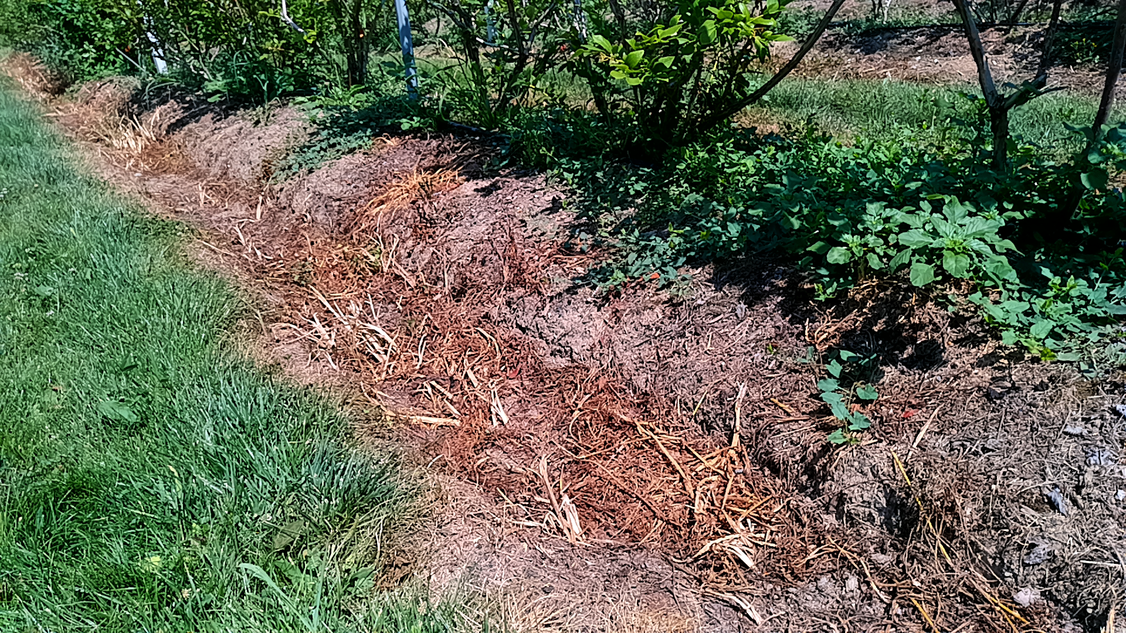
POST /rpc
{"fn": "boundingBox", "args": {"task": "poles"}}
[149,38,170,79]
[391,2,425,107]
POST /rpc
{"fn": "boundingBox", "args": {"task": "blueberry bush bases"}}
[460,26,544,128]
[954,16,1122,261]
[578,85,772,175]
[325,4,380,105]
